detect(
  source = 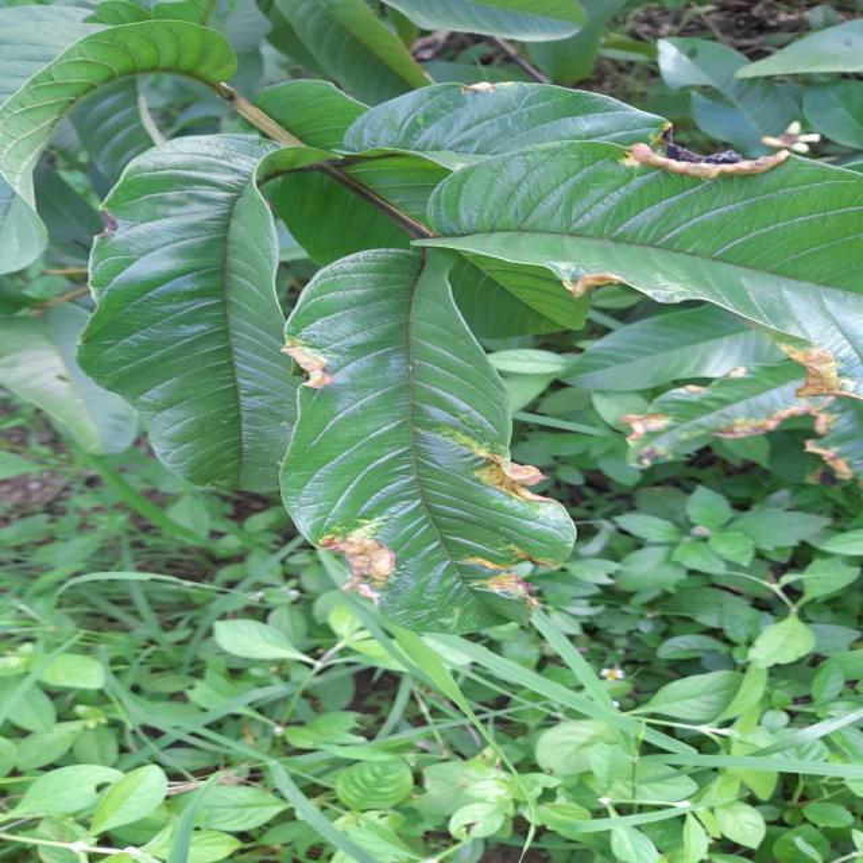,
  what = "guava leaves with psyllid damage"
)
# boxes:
[247,240,589,642]
[405,123,860,353]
